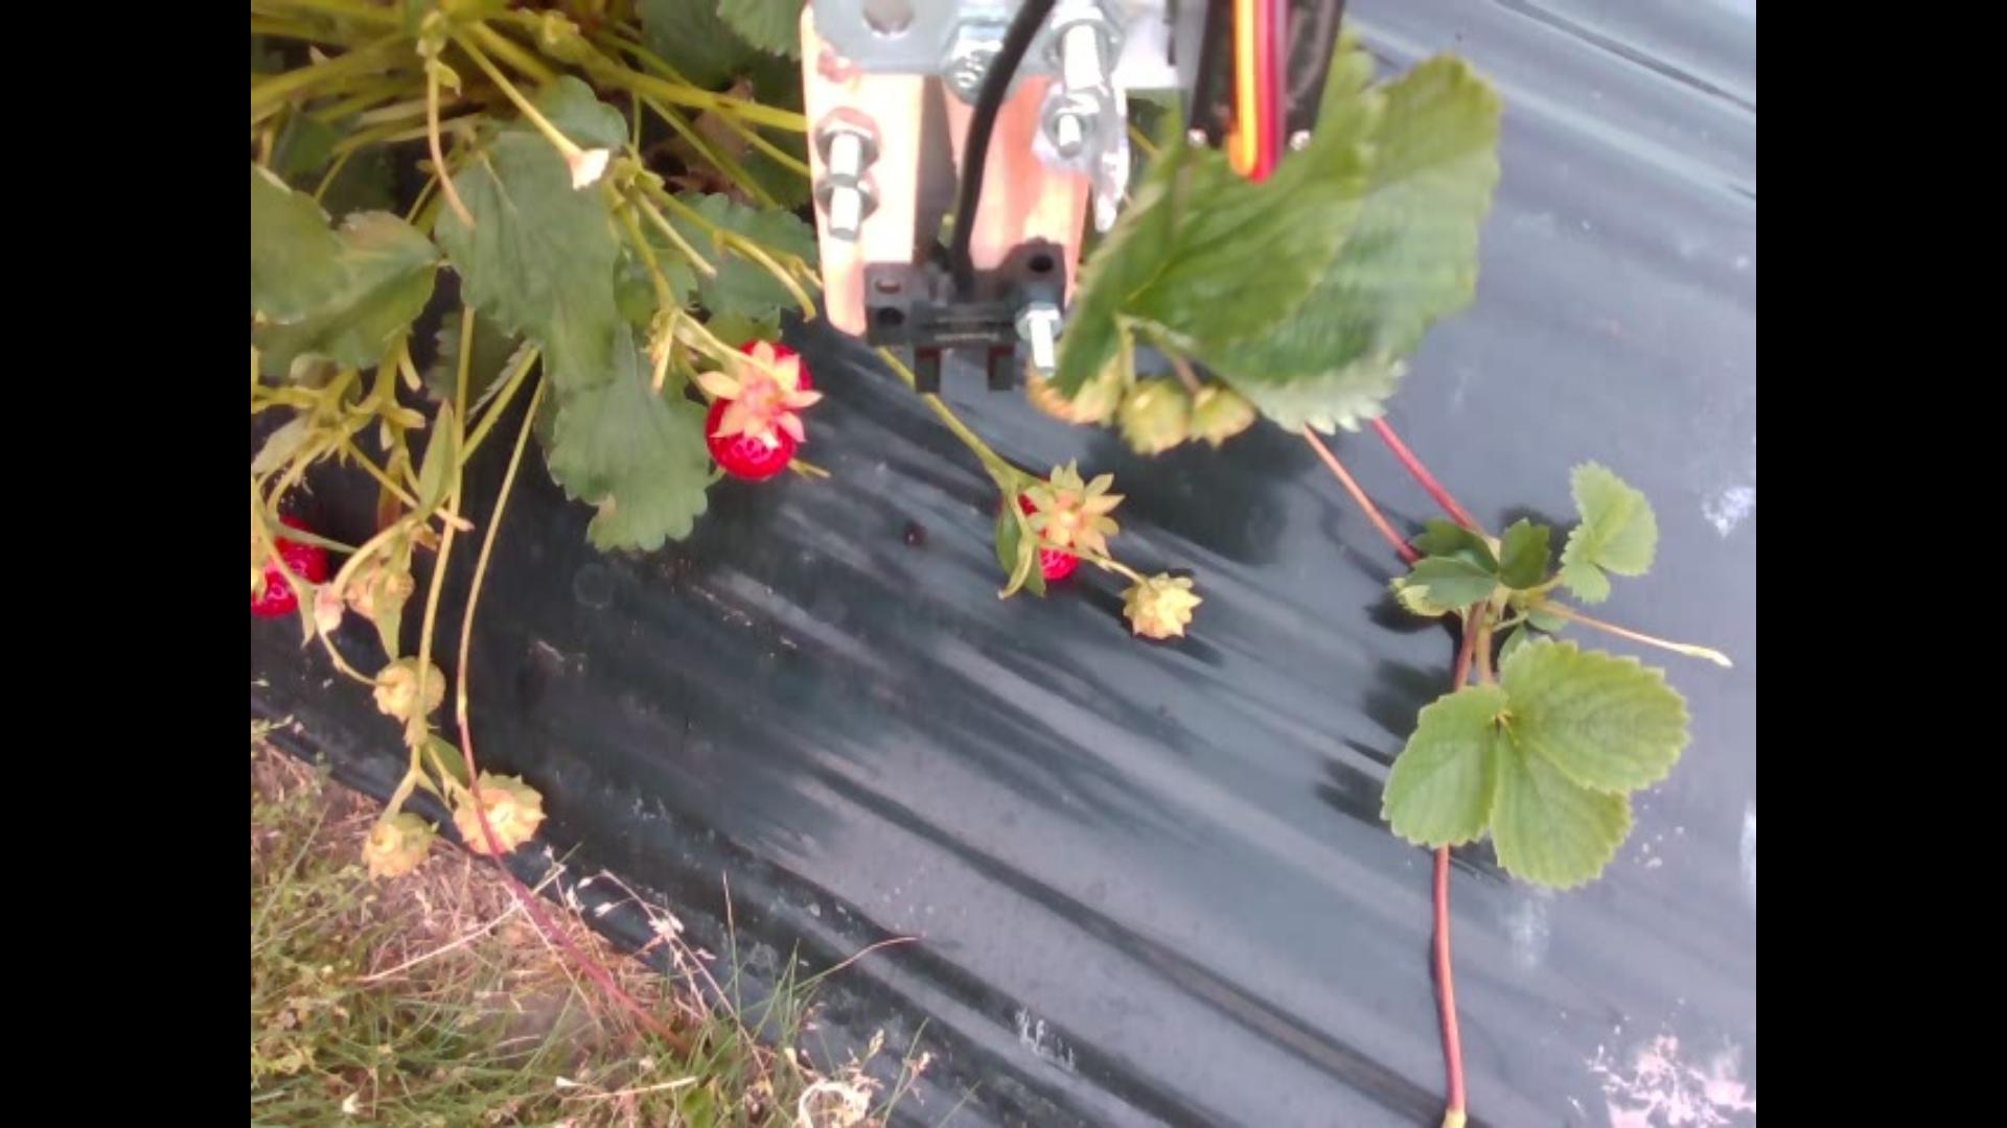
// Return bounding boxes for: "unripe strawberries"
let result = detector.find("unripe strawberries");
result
[1186,390,1265,451]
[375,649,443,720]
[1023,324,1129,427]
[358,810,430,884]
[1124,382,1193,464]
[440,773,550,861]
[1122,571,1215,648]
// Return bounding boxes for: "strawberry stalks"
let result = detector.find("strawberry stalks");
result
[1169,362,1223,415]
[1117,555,1176,606]
[974,455,1086,516]
[362,780,400,853]
[427,756,478,808]
[1112,354,1152,413]
[261,447,300,551]
[683,316,775,413]
[357,652,407,708]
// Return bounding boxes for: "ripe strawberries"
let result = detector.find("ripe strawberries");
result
[245,519,329,628]
[706,335,812,483]
[999,466,1098,585]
